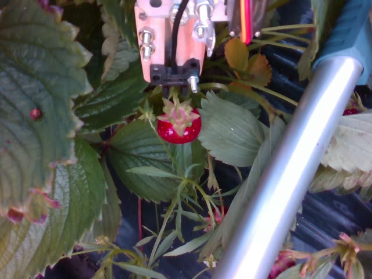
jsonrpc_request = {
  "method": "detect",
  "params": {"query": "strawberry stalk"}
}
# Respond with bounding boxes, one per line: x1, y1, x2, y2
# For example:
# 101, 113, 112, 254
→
173, 86, 184, 126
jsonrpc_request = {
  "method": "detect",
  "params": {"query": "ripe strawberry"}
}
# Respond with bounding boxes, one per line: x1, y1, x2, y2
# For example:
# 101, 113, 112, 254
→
159, 105, 200, 142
